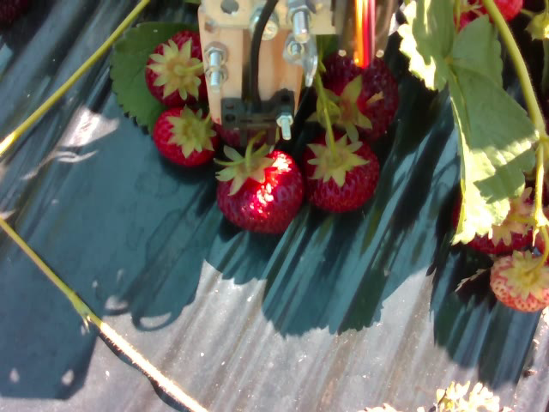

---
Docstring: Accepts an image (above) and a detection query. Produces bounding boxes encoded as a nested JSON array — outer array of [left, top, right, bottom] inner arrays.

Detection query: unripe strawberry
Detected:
[[492, 254, 549, 305]]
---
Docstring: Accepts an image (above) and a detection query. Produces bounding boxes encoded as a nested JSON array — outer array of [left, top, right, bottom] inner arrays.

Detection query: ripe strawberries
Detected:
[[462, 190, 537, 246], [217, 154, 301, 232], [151, 40, 210, 101], [316, 62, 393, 129], [152, 112, 215, 162], [317, 139, 383, 197]]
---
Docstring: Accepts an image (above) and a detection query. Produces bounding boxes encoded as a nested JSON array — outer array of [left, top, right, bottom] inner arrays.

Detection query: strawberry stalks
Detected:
[[169, 55, 210, 80], [180, 120, 222, 139], [241, 128, 271, 190], [314, 72, 342, 176]]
